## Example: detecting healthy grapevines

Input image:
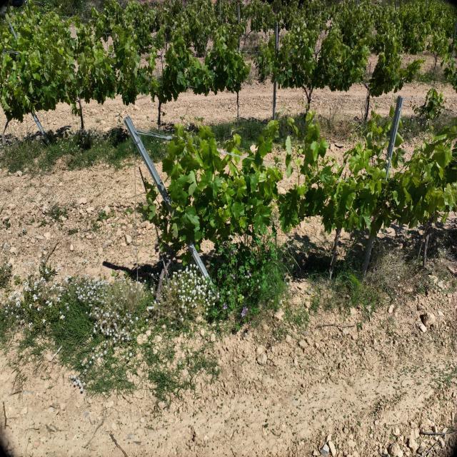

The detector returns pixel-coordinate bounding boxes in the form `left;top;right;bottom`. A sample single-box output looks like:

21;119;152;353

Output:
396;118;457;289
109;112;292;312
288;107;392;300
